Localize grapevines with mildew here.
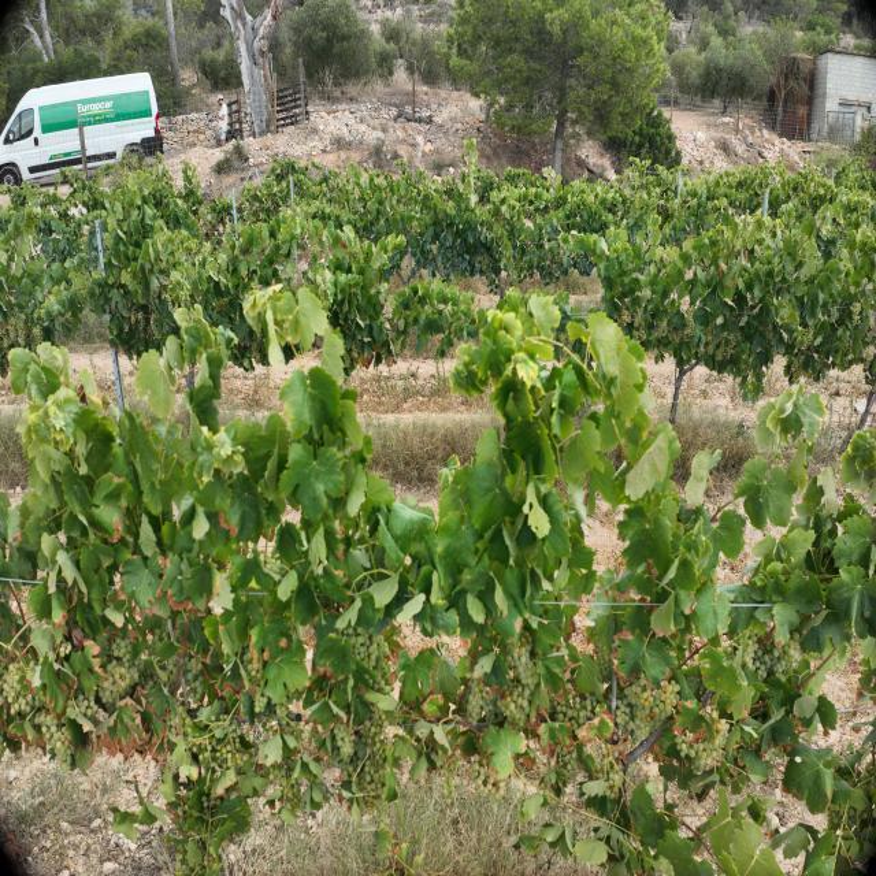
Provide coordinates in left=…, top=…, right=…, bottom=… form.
left=0, top=389, right=435, bottom=876
left=433, top=338, right=876, bottom=876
